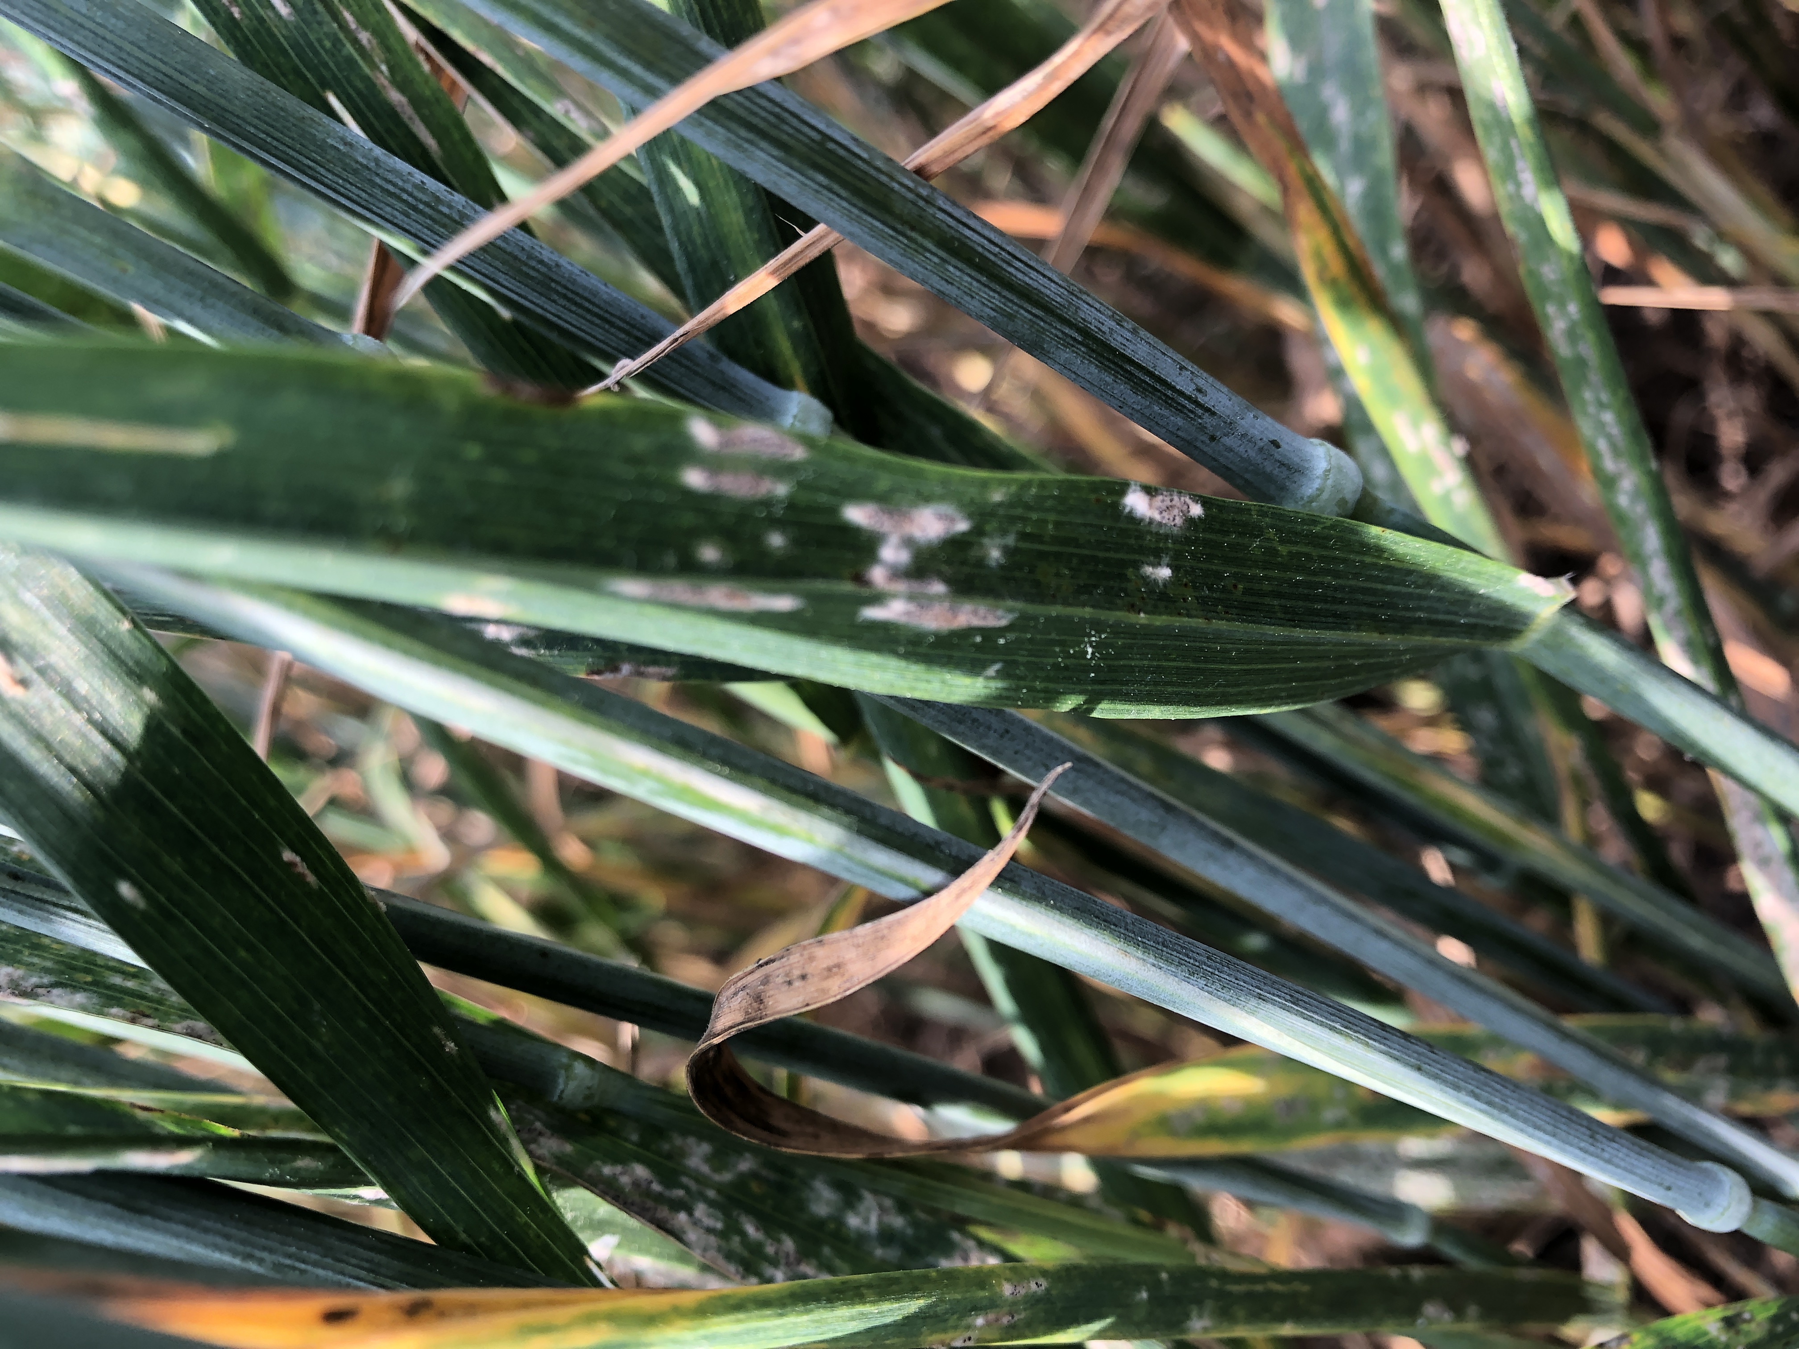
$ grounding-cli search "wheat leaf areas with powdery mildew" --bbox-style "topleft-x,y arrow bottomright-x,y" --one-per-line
0,920 -> 202,1051
479,385 -> 1243,683
256,0 -> 452,167
1139,1242 -> 1265,1339
891,1260 -> 1092,1349
1414,648 -> 1518,784
492,1067 -> 1012,1302
261,823 -> 333,895
0,50 -> 160,239
92,858 -> 167,928
1339,1240 -> 1523,1341
1468,1 -> 1733,672
1253,3 -> 1394,301
0,586 -> 172,752
1583,997 -> 1763,1118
